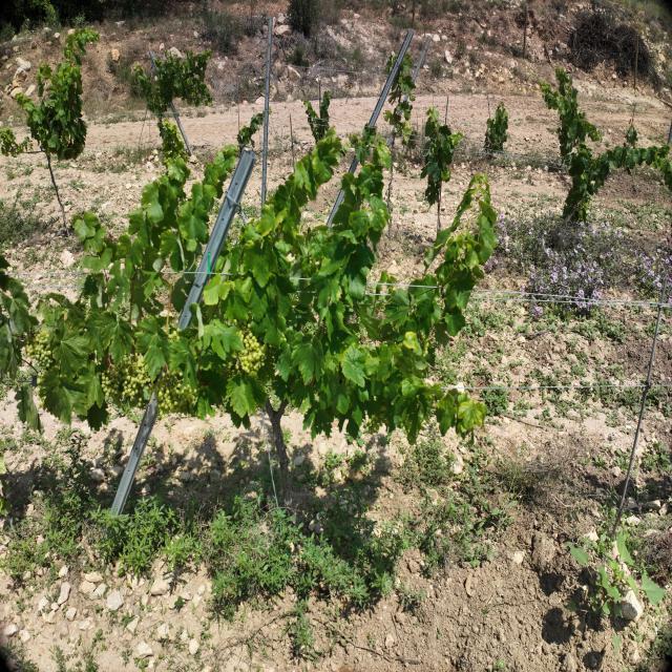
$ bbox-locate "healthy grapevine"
[37,136,505,553]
